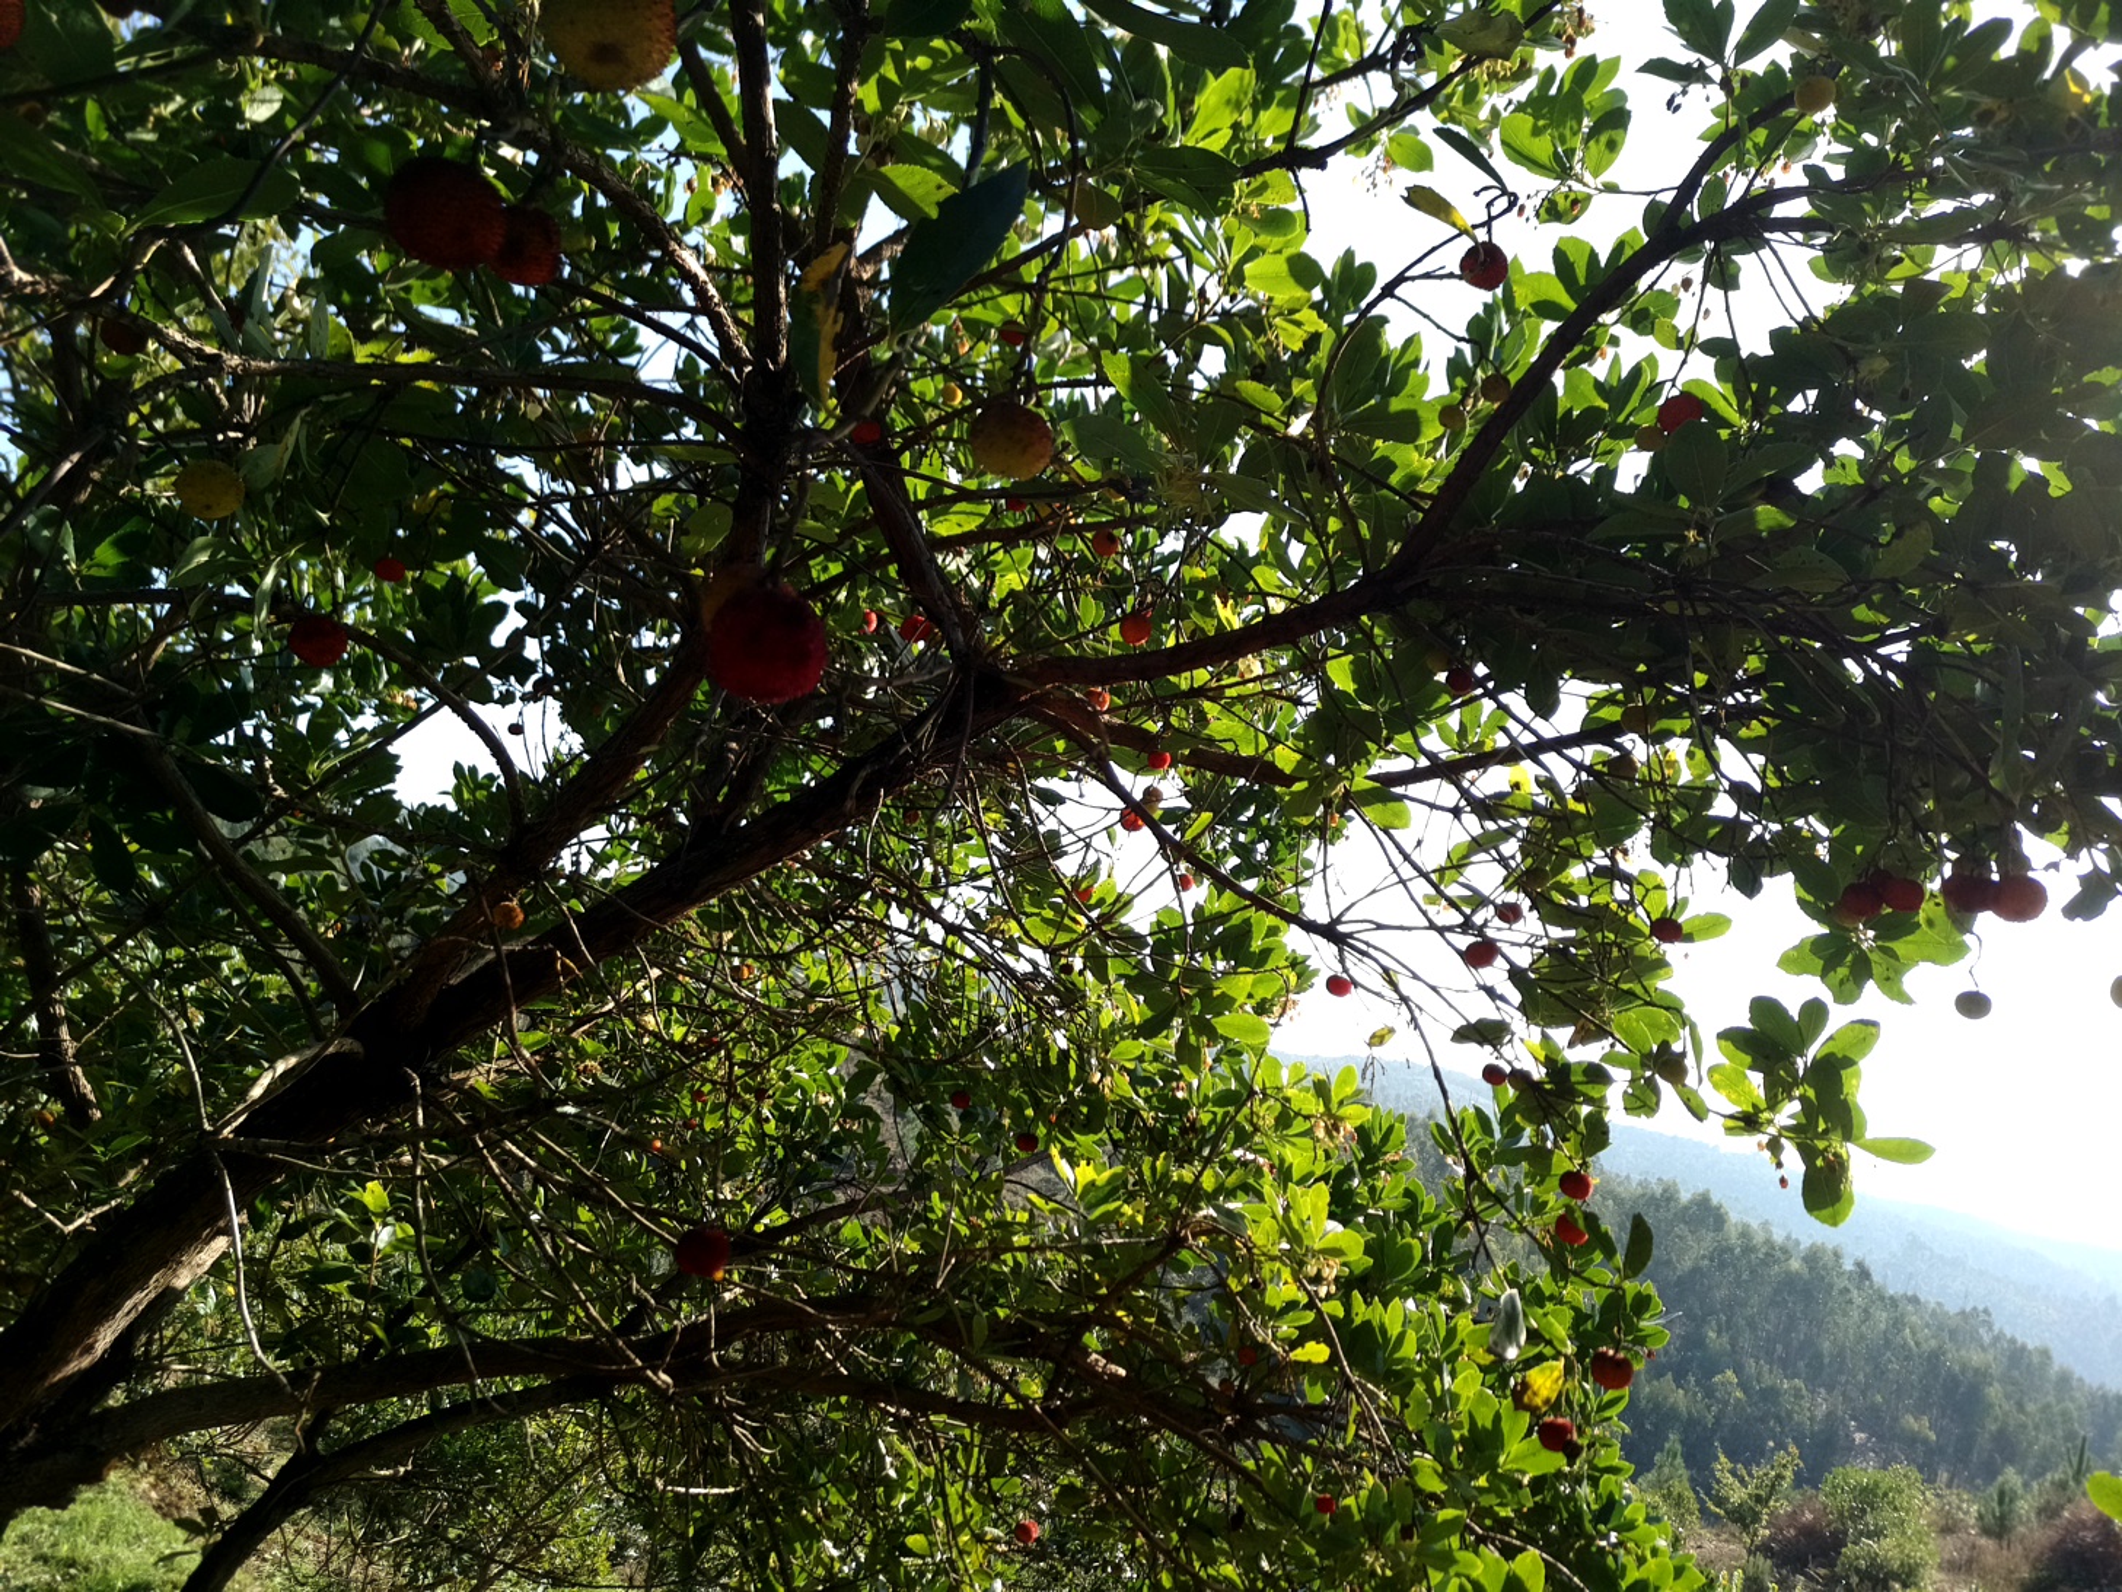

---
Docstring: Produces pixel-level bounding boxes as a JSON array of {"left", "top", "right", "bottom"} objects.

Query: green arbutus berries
[
  {"left": 1956, "top": 991, "right": 1995, "bottom": 1019},
  {"left": 1794, "top": 72, "right": 1836, "bottom": 115},
  {"left": 174, "top": 453, "right": 244, "bottom": 518},
  {"left": 1656, "top": 1055, "right": 1690, "bottom": 1082},
  {"left": 1438, "top": 405, "right": 1468, "bottom": 429},
  {"left": 1507, "top": 1066, "right": 1535, "bottom": 1093},
  {"left": 1420, "top": 645, "right": 1451, "bottom": 673},
  {"left": 1481, "top": 372, "right": 1515, "bottom": 405},
  {"left": 1632, "top": 424, "right": 1666, "bottom": 452}
]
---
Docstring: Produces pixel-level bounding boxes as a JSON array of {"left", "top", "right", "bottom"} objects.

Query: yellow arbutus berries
[
  {"left": 489, "top": 901, "right": 525, "bottom": 931},
  {"left": 1137, "top": 795, "right": 1160, "bottom": 814},
  {"left": 1830, "top": 903, "right": 1866, "bottom": 930},
  {"left": 1143, "top": 784, "right": 1166, "bottom": 800},
  {"left": 1101, "top": 466, "right": 1132, "bottom": 502},
  {"left": 937, "top": 382, "right": 963, "bottom": 405},
  {"left": 539, "top": 0, "right": 675, "bottom": 89},
  {"left": 969, "top": 401, "right": 1053, "bottom": 479}
]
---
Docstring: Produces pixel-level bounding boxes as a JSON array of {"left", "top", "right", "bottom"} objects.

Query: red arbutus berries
[
  {"left": 700, "top": 588, "right": 831, "bottom": 705},
  {"left": 1313, "top": 1493, "right": 1338, "bottom": 1514},
  {"left": 492, "top": 208, "right": 567, "bottom": 291},
  {"left": 1004, "top": 491, "right": 1029, "bottom": 512},
  {"left": 852, "top": 418, "right": 882, "bottom": 445},
  {"left": 1539, "top": 1416, "right": 1576, "bottom": 1449},
  {"left": 377, "top": 560, "right": 406, "bottom": 582},
  {"left": 1448, "top": 666, "right": 1473, "bottom": 693},
  {"left": 1237, "top": 1345, "right": 1258, "bottom": 1366},
  {"left": 1013, "top": 1131, "right": 1039, "bottom": 1153},
  {"left": 1455, "top": 239, "right": 1509, "bottom": 291},
  {"left": 1465, "top": 939, "right": 1498, "bottom": 968},
  {"left": 1991, "top": 873, "right": 2048, "bottom": 929},
  {"left": 384, "top": 157, "right": 507, "bottom": 263},
  {"left": 1940, "top": 872, "right": 1994, "bottom": 916},
  {"left": 1844, "top": 879, "right": 1883, "bottom": 918},
  {"left": 1586, "top": 1340, "right": 1634, "bottom": 1388},
  {"left": 1091, "top": 530, "right": 1119, "bottom": 557},
  {"left": 1073, "top": 881, "right": 1093, "bottom": 904},
  {"left": 1174, "top": 873, "right": 1197, "bottom": 890},
  {"left": 291, "top": 614, "right": 345, "bottom": 665},
  {"left": 693, "top": 568, "right": 807, "bottom": 627},
  {"left": 1653, "top": 915, "right": 1684, "bottom": 943},
  {"left": 691, "top": 1089, "right": 708, "bottom": 1104},
  {"left": 1119, "top": 805, "right": 1145, "bottom": 832},
  {"left": 950, "top": 1089, "right": 972, "bottom": 1108},
  {"left": 999, "top": 319, "right": 1024, "bottom": 348},
  {"left": 1560, "top": 1168, "right": 1596, "bottom": 1200},
  {"left": 1482, "top": 1062, "right": 1507, "bottom": 1083},
  {"left": 856, "top": 609, "right": 878, "bottom": 637},
  {"left": 1083, "top": 687, "right": 1111, "bottom": 713},
  {"left": 1493, "top": 899, "right": 1523, "bottom": 925},
  {"left": 1655, "top": 393, "right": 1707, "bottom": 431},
  {"left": 1148, "top": 751, "right": 1171, "bottom": 770},
  {"left": 674, "top": 1223, "right": 734, "bottom": 1283},
  {"left": 1013, "top": 1518, "right": 1042, "bottom": 1544},
  {"left": 1556, "top": 1211, "right": 1588, "bottom": 1246},
  {"left": 683, "top": 1118, "right": 698, "bottom": 1129},
  {"left": 898, "top": 614, "right": 932, "bottom": 644},
  {"left": 1881, "top": 879, "right": 1926, "bottom": 912},
  {"left": 1119, "top": 614, "right": 1152, "bottom": 647},
  {"left": 1326, "top": 973, "right": 1352, "bottom": 998}
]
